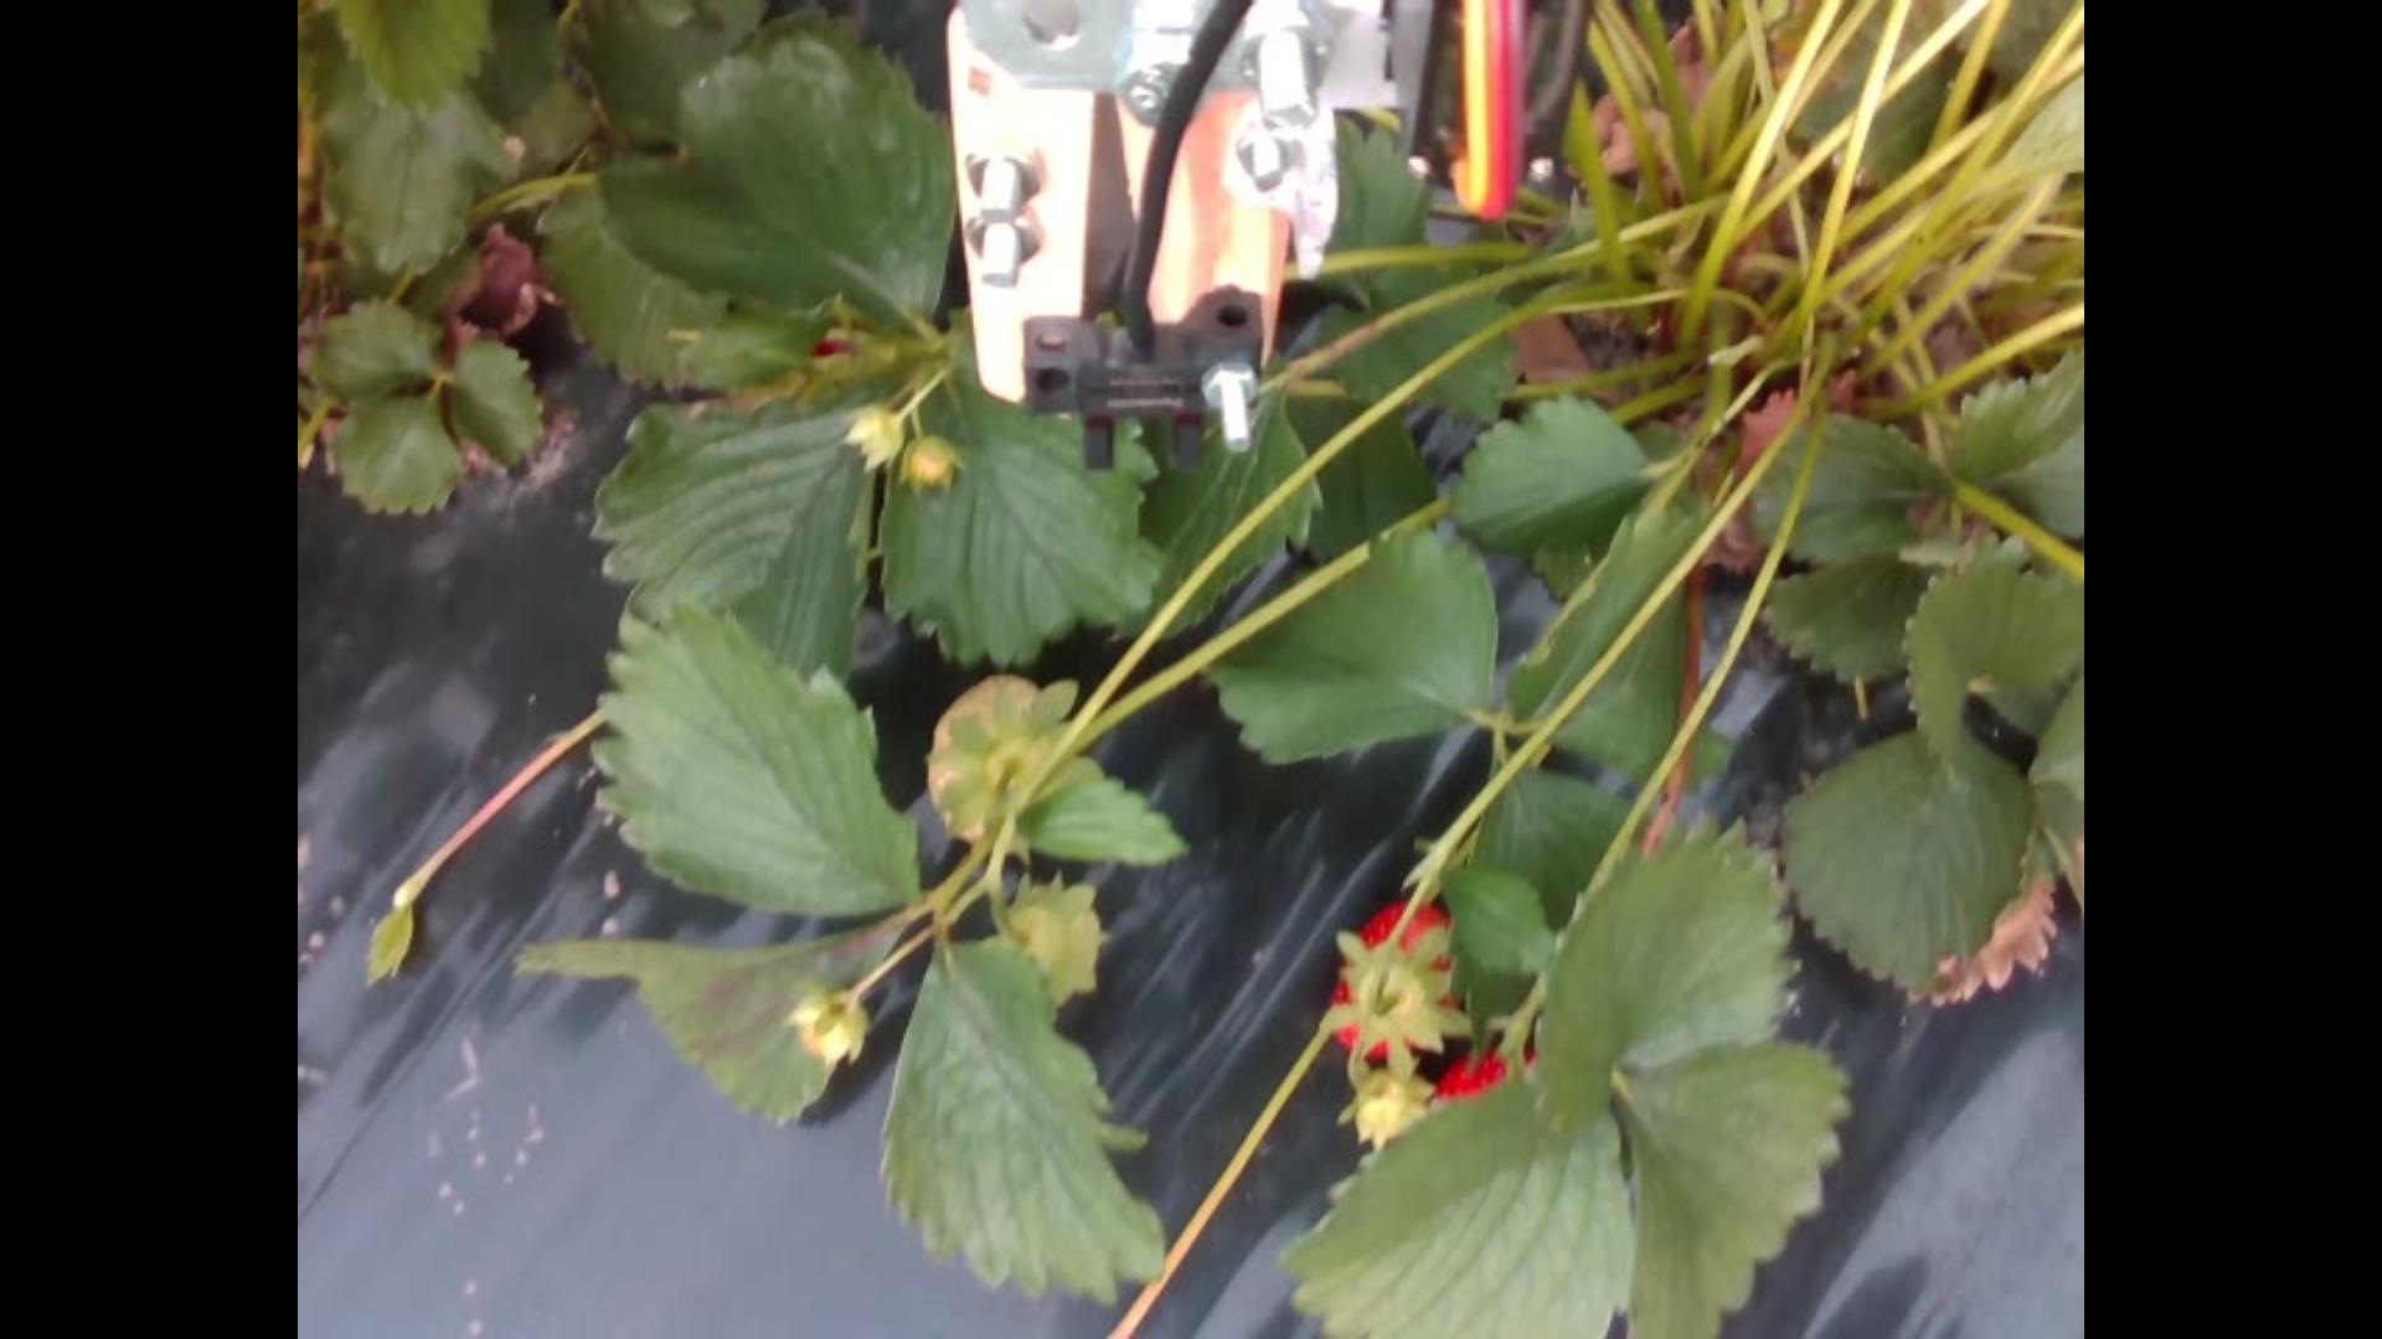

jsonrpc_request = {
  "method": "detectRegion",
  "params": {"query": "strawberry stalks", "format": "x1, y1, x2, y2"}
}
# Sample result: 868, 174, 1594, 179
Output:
786, 985, 879, 1059
888, 377, 914, 423
899, 407, 943, 443
1479, 956, 1553, 1076
1360, 889, 1436, 1024
827, 955, 913, 1010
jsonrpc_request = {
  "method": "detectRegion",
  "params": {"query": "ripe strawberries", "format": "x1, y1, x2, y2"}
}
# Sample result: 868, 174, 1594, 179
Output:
1339, 911, 1472, 1062
775, 291, 891, 368
1438, 1019, 1574, 1184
